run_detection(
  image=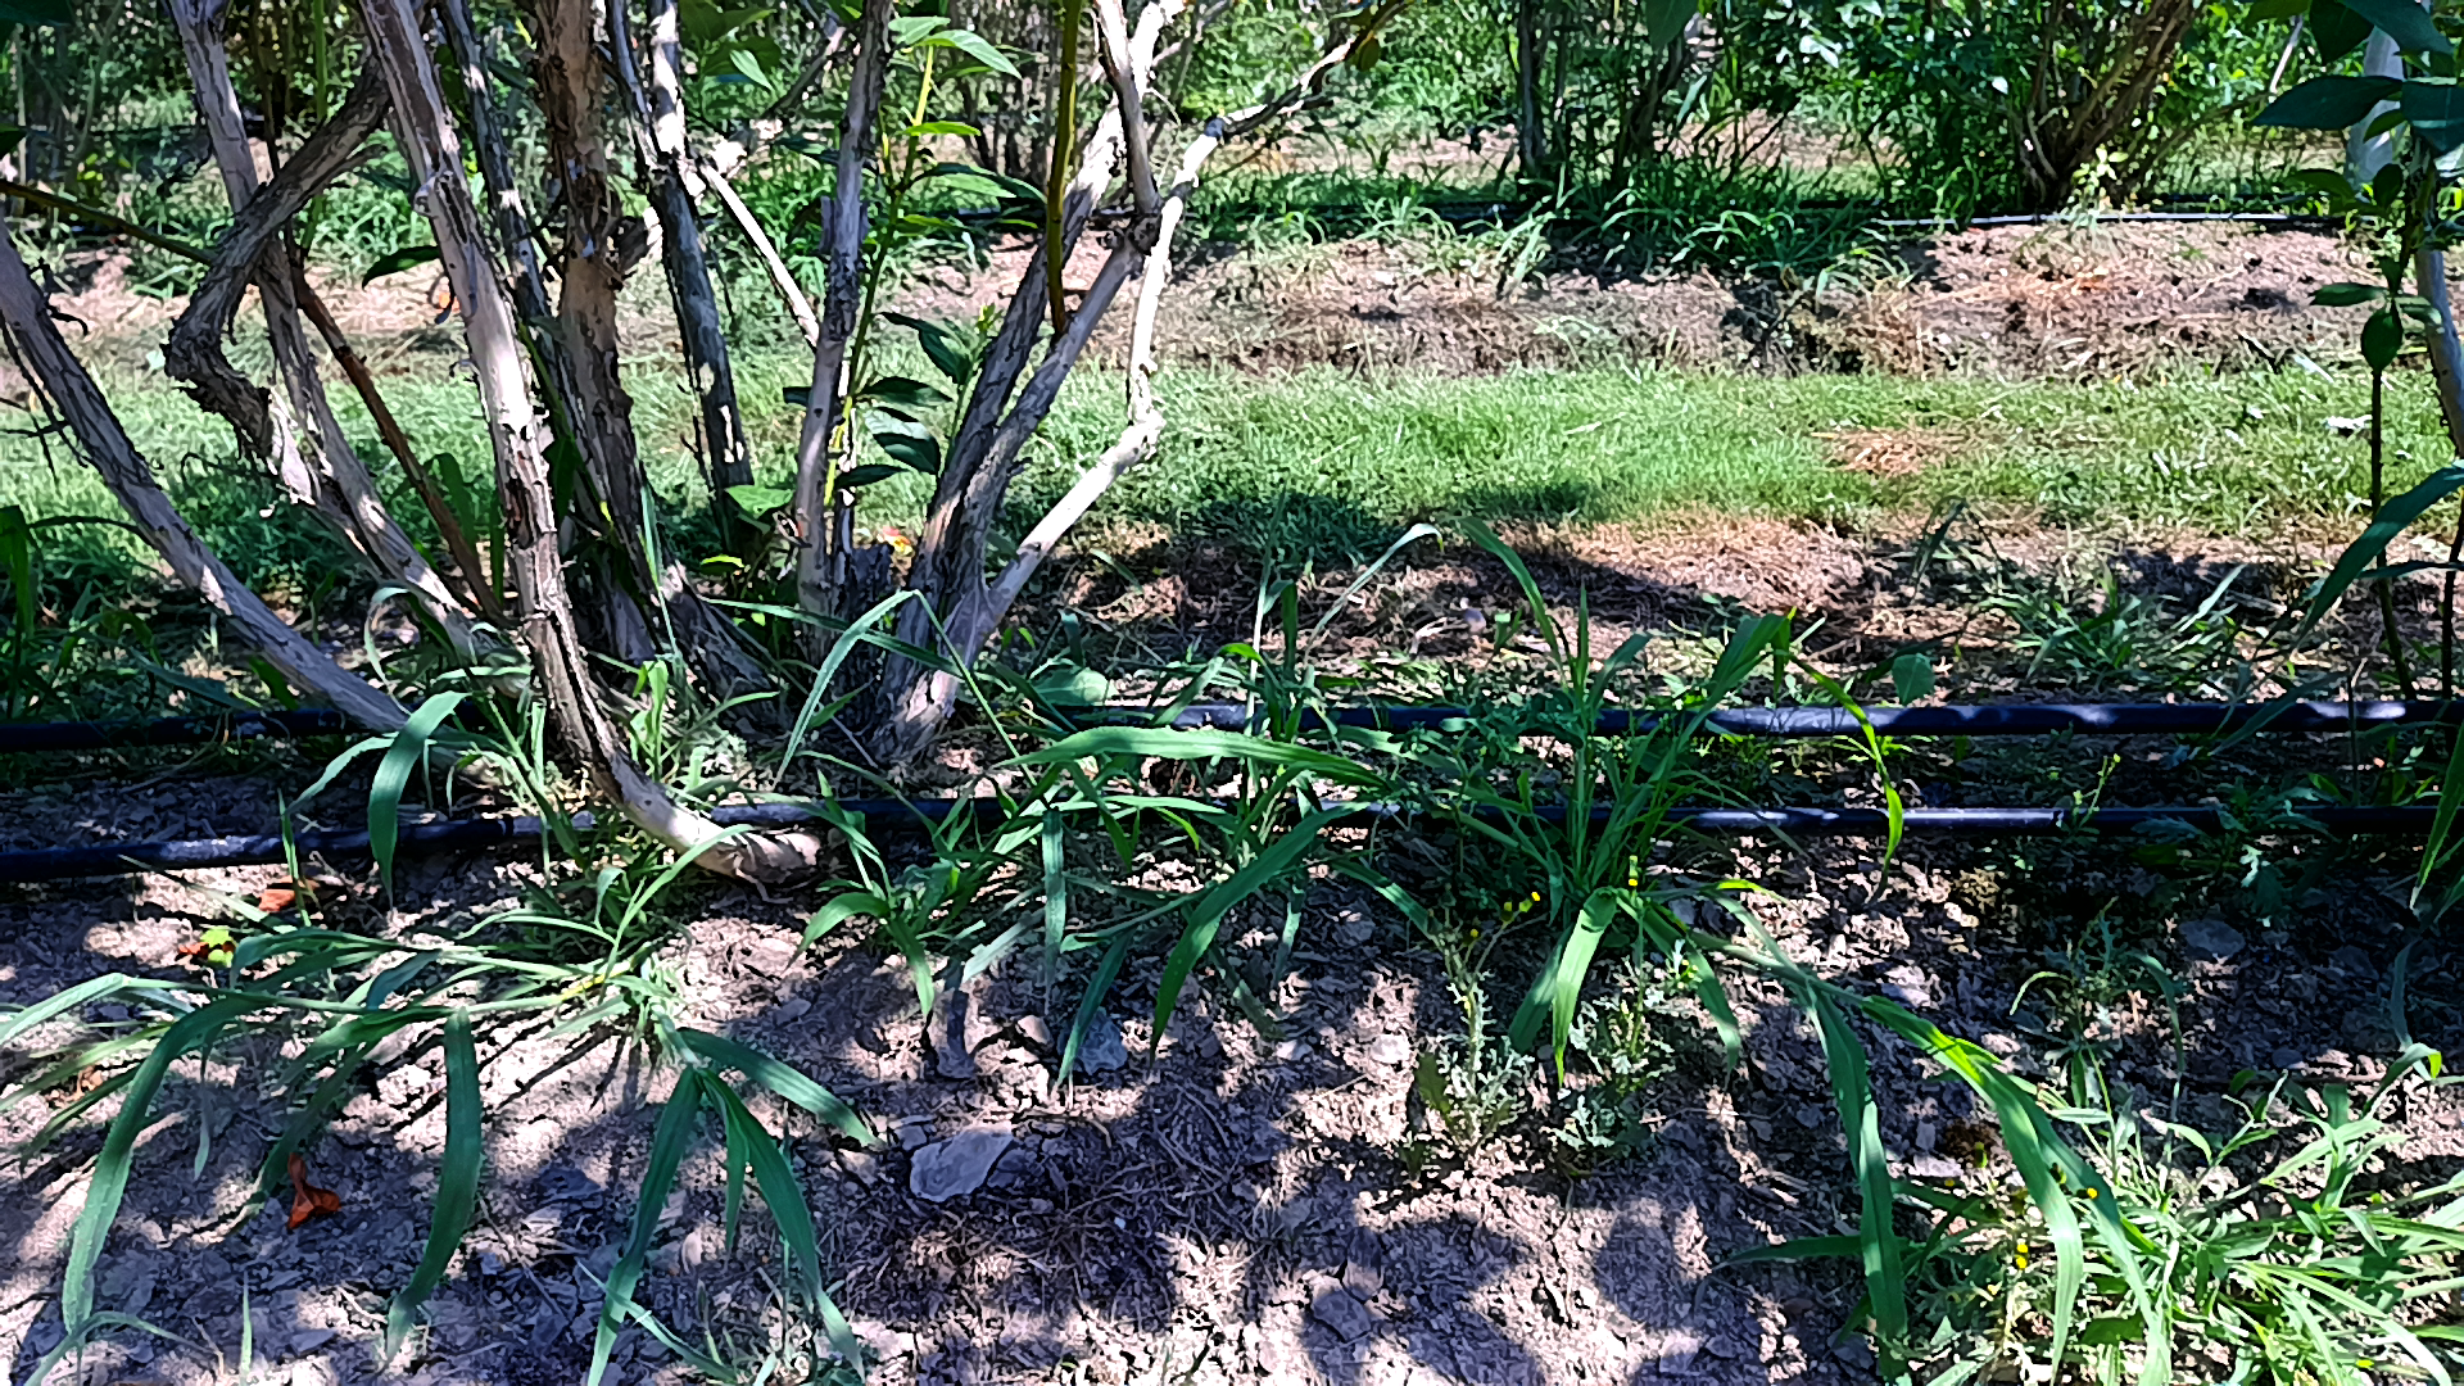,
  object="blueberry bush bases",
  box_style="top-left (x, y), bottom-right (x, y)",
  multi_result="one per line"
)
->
top-left (1951, 132), bottom-right (2152, 258)
top-left (1477, 140), bottom-right (1678, 265)
top-left (179, 331), bottom-right (1171, 1024)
